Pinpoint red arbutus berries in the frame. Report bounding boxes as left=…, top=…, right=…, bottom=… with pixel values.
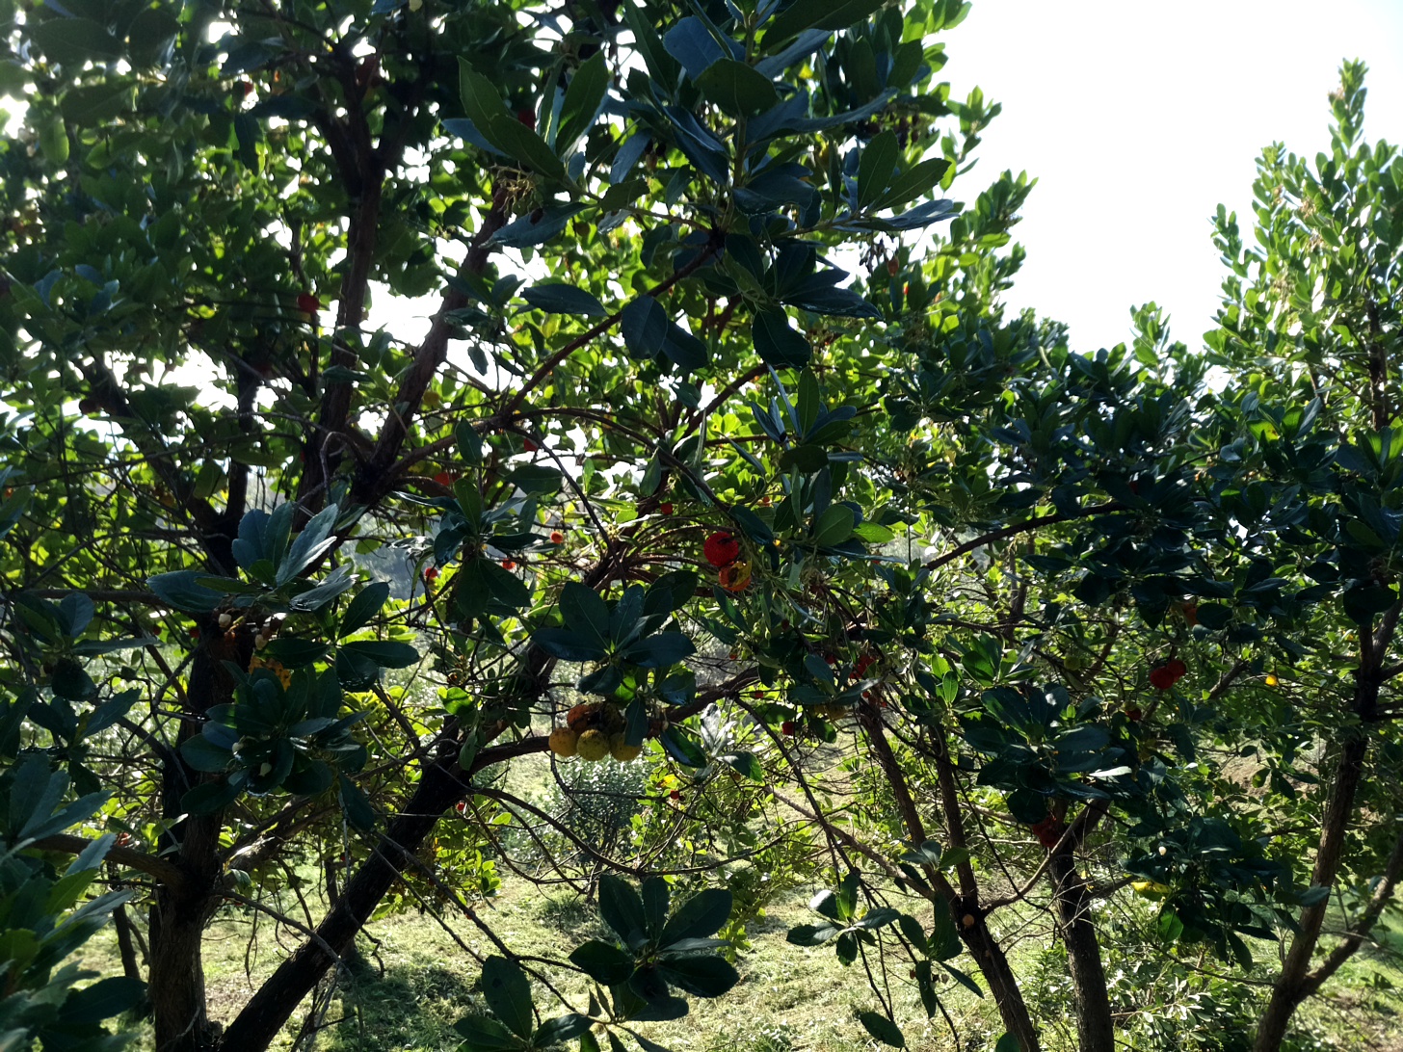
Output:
left=1125, top=706, right=1141, bottom=719
left=1168, top=658, right=1187, bottom=676
left=502, top=558, right=516, bottom=570
left=862, top=690, right=870, bottom=698
left=670, top=790, right=679, bottom=799
left=661, top=502, right=674, bottom=514
left=703, top=531, right=740, bottom=567
left=1038, top=826, right=1064, bottom=848
left=297, top=292, right=320, bottom=313
left=551, top=531, right=563, bottom=545
left=782, top=721, right=795, bottom=736
left=1149, top=667, right=1174, bottom=689
left=825, top=653, right=835, bottom=664
left=189, top=627, right=200, bottom=638
left=425, top=567, right=437, bottom=577
left=524, top=435, right=537, bottom=451
left=755, top=689, right=763, bottom=698
left=566, top=704, right=595, bottom=732
left=457, top=803, right=464, bottom=810
left=434, top=472, right=450, bottom=488
left=729, top=652, right=737, bottom=659
left=718, top=561, right=751, bottom=591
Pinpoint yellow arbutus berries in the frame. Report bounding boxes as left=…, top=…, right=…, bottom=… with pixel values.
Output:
left=1265, top=674, right=1278, bottom=686
left=962, top=914, right=974, bottom=927
left=577, top=730, right=609, bottom=762
left=548, top=727, right=578, bottom=757
left=610, top=733, right=643, bottom=761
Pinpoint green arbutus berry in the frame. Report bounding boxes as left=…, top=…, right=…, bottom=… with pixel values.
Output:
left=734, top=773, right=741, bottom=780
